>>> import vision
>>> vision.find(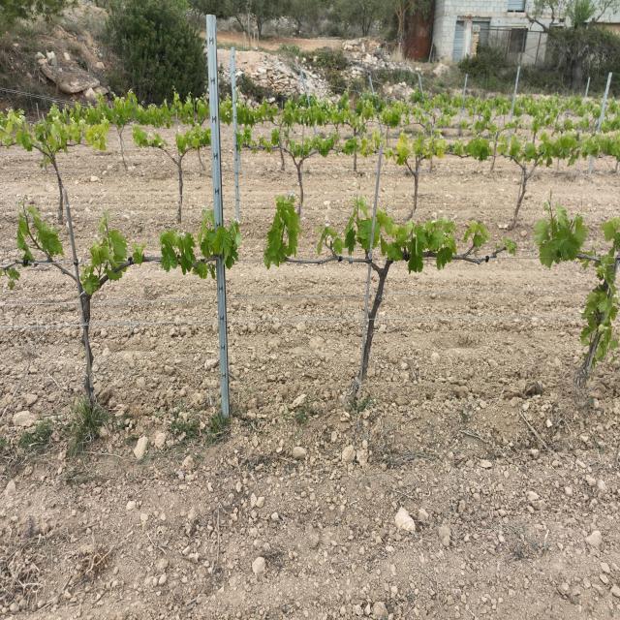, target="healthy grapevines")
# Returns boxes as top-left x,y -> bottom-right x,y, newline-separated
259,195 -> 518,438
0,202 -> 250,420
531,201 -> 620,391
